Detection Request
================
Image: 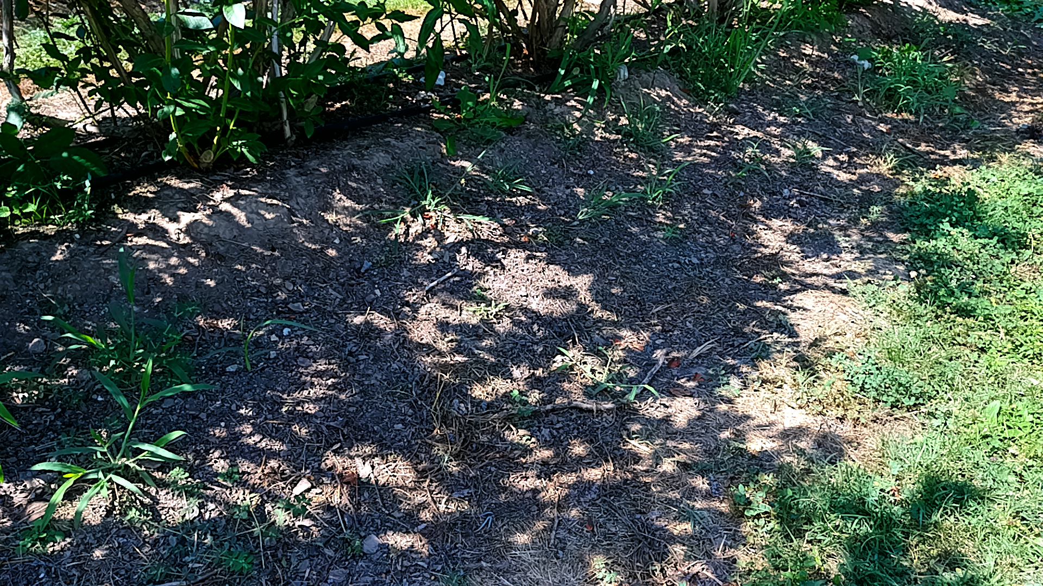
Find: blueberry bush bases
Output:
[471,2,624,125]
[96,32,337,204]
[657,2,773,79]
[1,10,27,248]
